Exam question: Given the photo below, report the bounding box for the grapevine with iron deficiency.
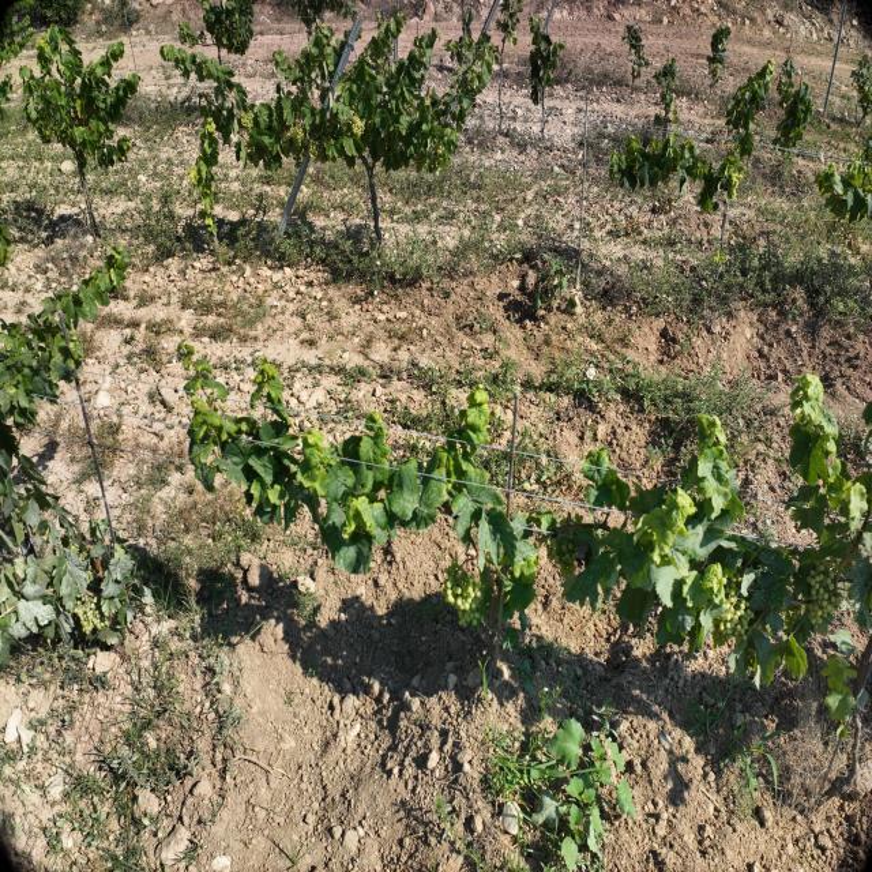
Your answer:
[178,381,809,717]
